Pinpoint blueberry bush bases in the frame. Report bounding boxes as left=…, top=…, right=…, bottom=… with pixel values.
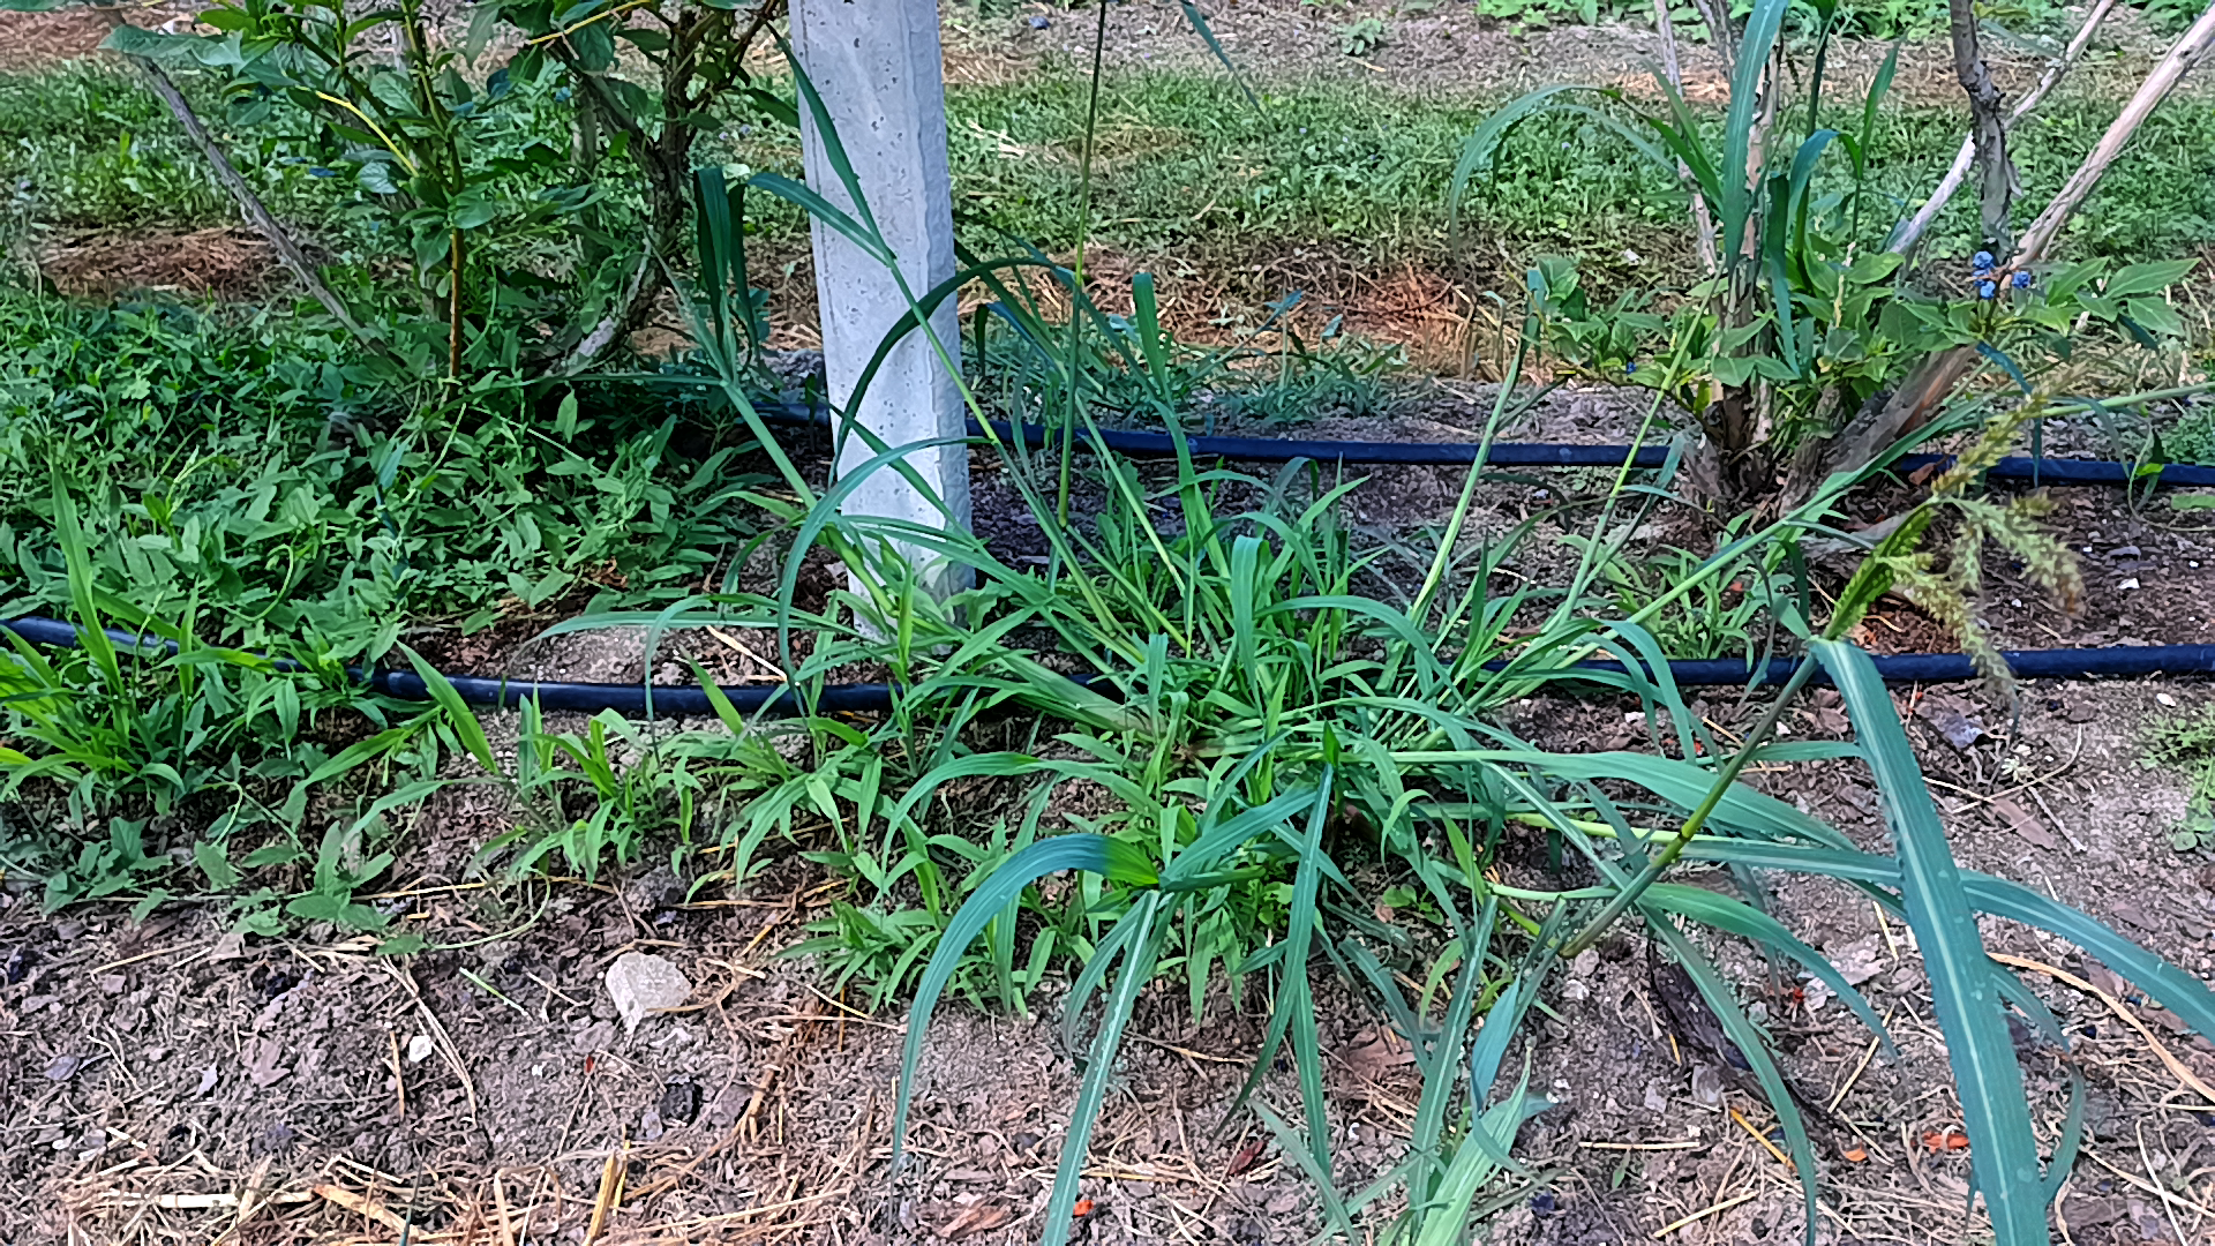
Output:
left=1635, top=213, right=2050, bottom=674
left=189, top=119, right=738, bottom=575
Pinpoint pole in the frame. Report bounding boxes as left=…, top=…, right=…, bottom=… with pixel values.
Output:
left=773, top=0, right=1001, bottom=613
